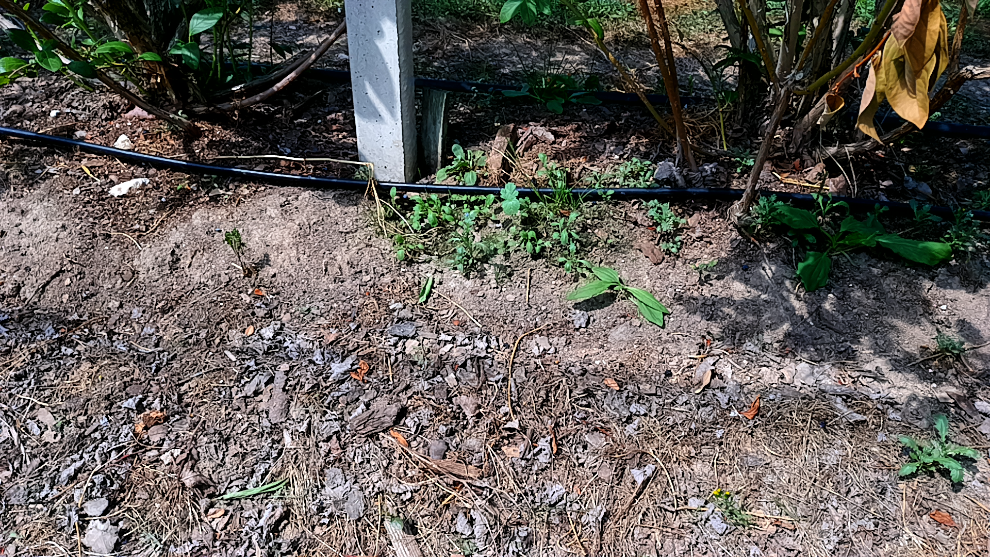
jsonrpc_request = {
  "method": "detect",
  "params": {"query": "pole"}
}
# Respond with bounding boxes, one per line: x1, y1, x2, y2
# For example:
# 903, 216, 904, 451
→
336, 11, 429, 190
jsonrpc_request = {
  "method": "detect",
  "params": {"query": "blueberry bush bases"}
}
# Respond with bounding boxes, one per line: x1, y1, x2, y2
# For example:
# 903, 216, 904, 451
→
620, 0, 987, 242
47, 27, 287, 151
